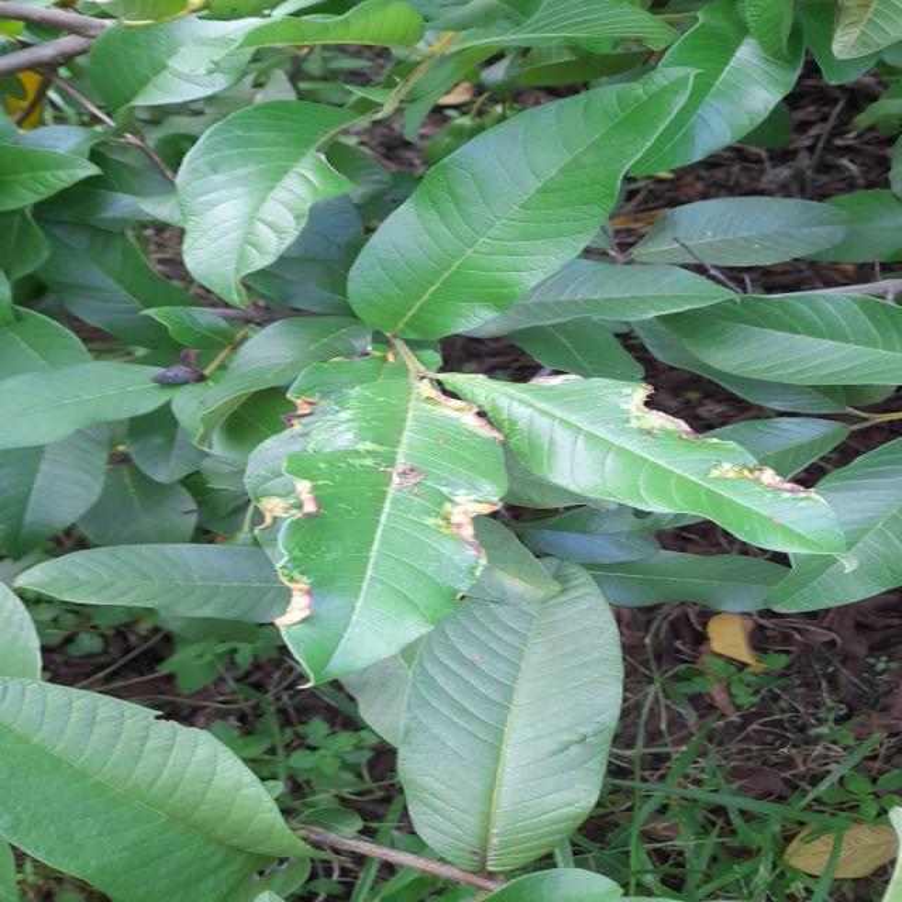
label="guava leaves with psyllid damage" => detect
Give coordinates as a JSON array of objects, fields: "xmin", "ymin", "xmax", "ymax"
[
  {"xmin": 413, "ymin": 348, "xmax": 902, "ymax": 555},
  {"xmin": 258, "ymin": 337, "xmax": 545, "ymax": 694}
]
